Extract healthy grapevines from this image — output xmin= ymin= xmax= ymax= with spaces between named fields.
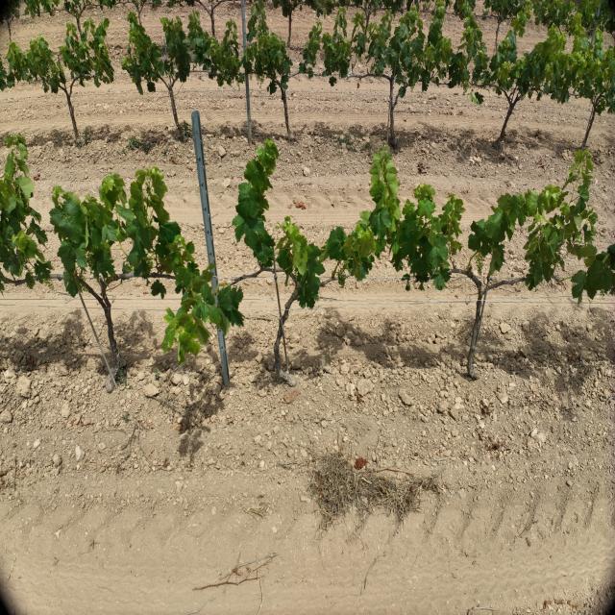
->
xmin=0 ymin=142 xmax=210 ymax=406
xmin=393 ymin=174 xmax=612 ymax=394
xmin=207 ymin=135 xmax=406 ymax=403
